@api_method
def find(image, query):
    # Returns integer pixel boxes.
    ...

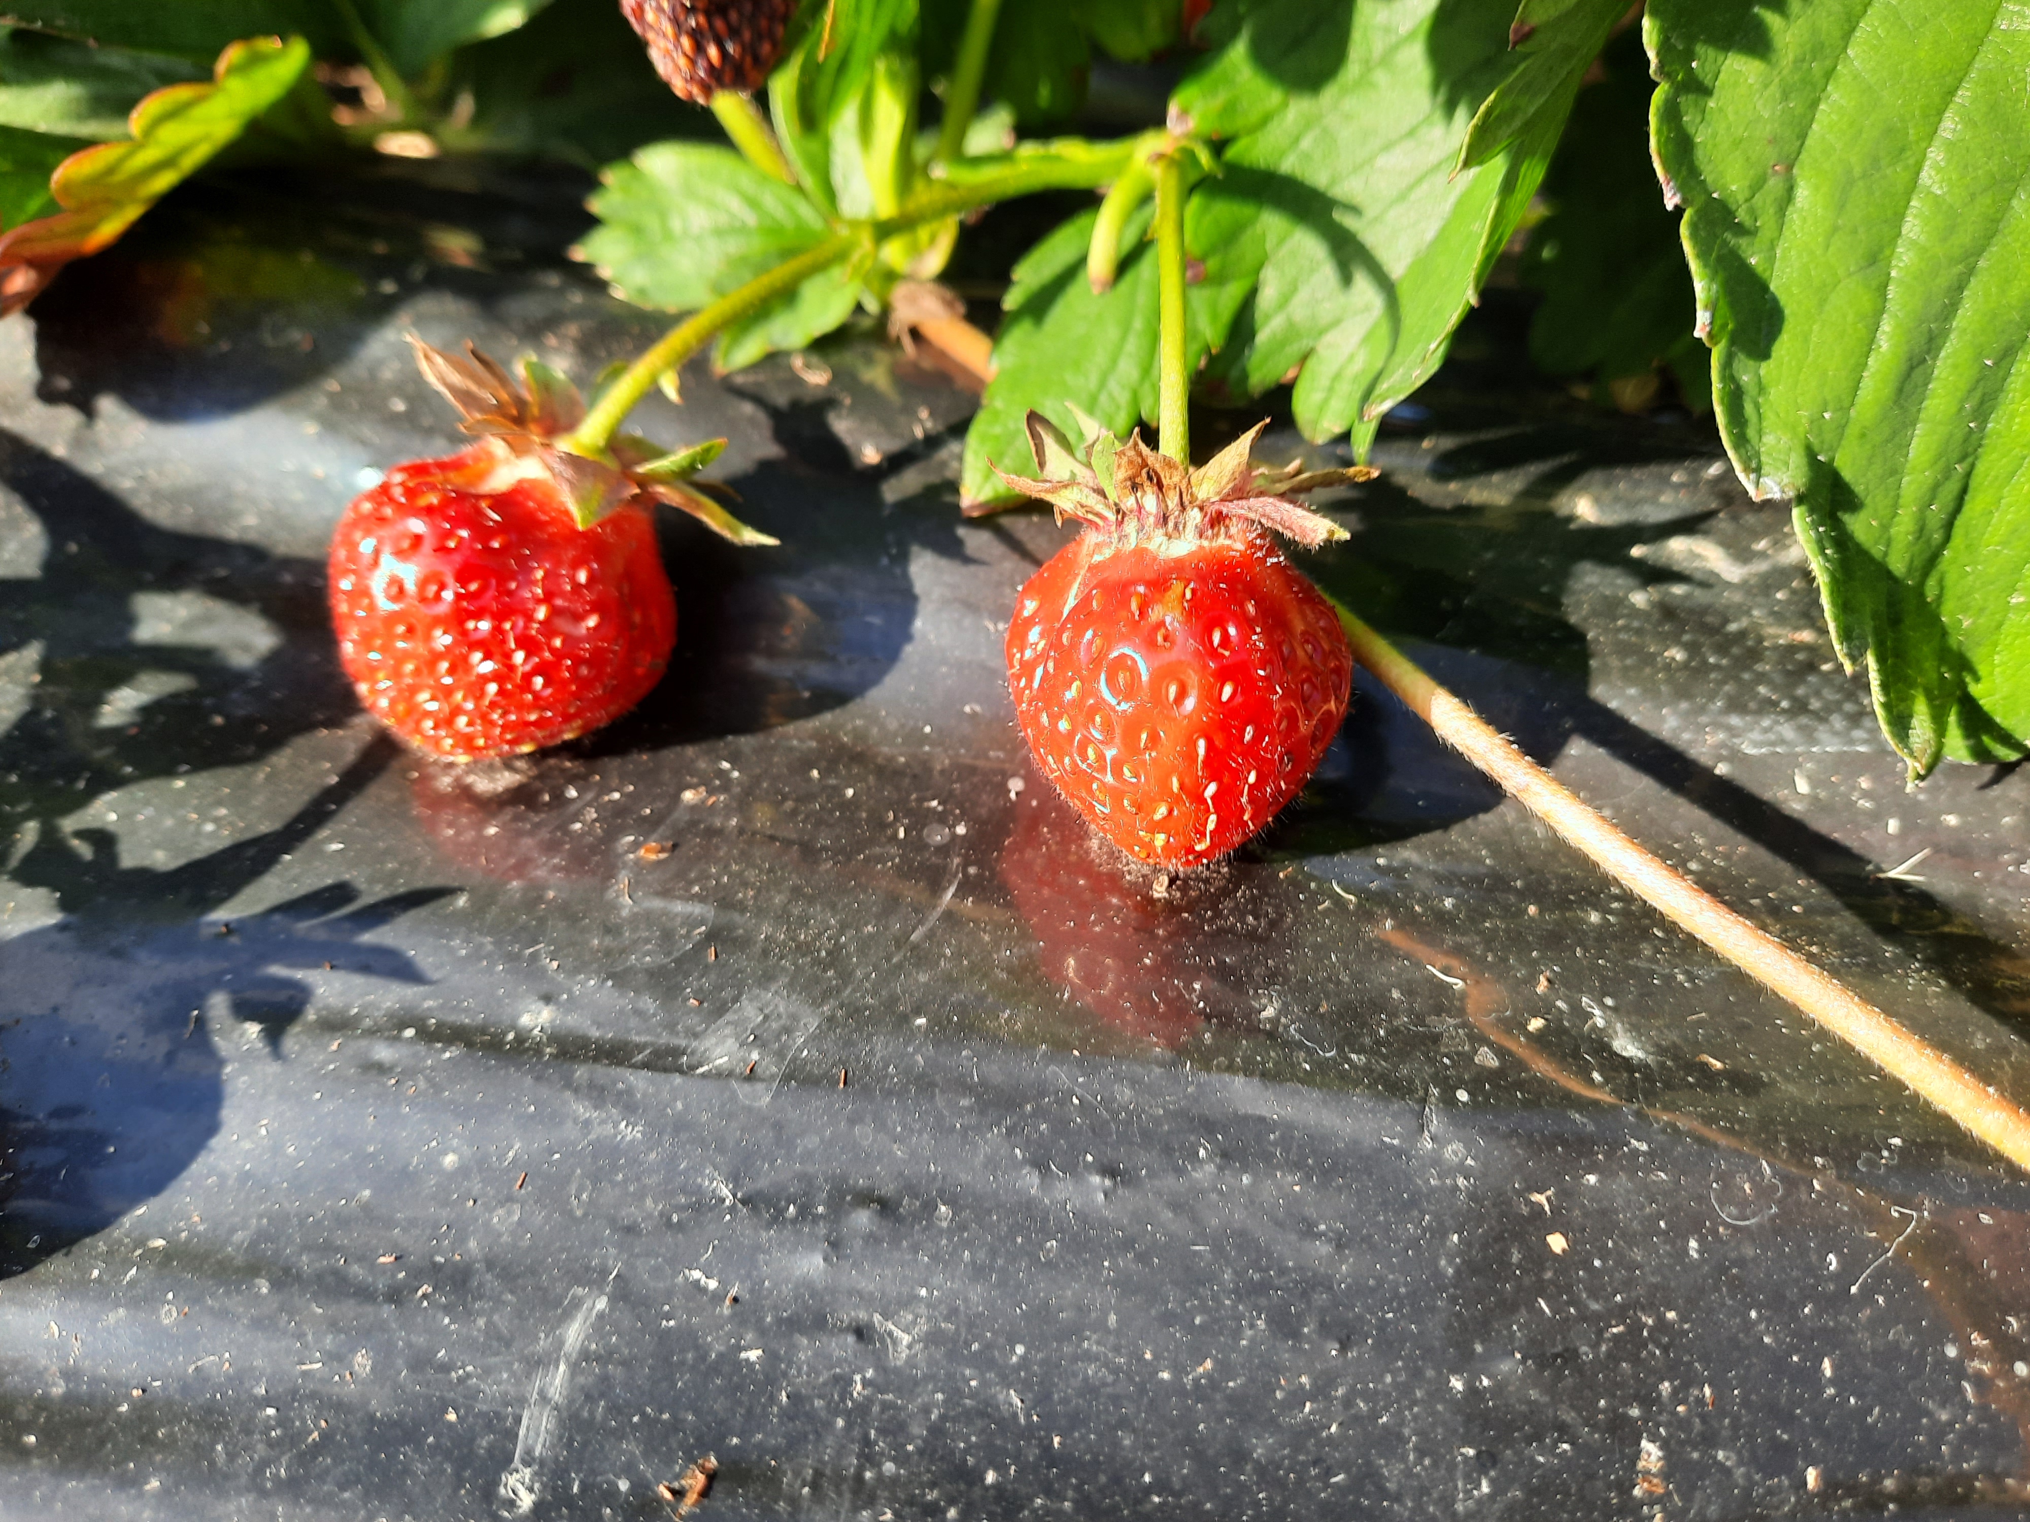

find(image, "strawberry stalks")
[1140,166,1195,621]
[495,234,854,510]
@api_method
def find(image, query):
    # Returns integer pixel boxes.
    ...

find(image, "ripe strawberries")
[334,430,669,754]
[1017,537,1307,851]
